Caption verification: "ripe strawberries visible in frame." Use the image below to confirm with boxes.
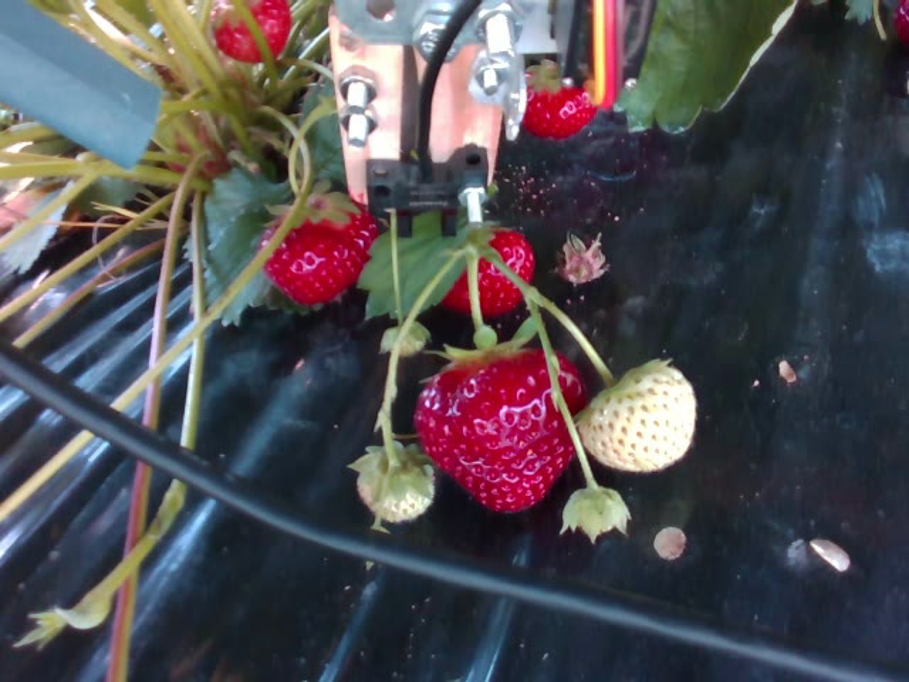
[440,229,533,317]
[514,68,604,139]
[260,204,373,297]
[422,359,579,507]
[216,0,341,62]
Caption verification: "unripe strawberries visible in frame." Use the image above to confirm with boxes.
[350,448,427,518]
[581,368,702,471]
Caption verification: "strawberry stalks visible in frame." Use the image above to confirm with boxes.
[469,248,501,383]
[547,292,624,412]
[290,133,315,225]
[381,334,409,499]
